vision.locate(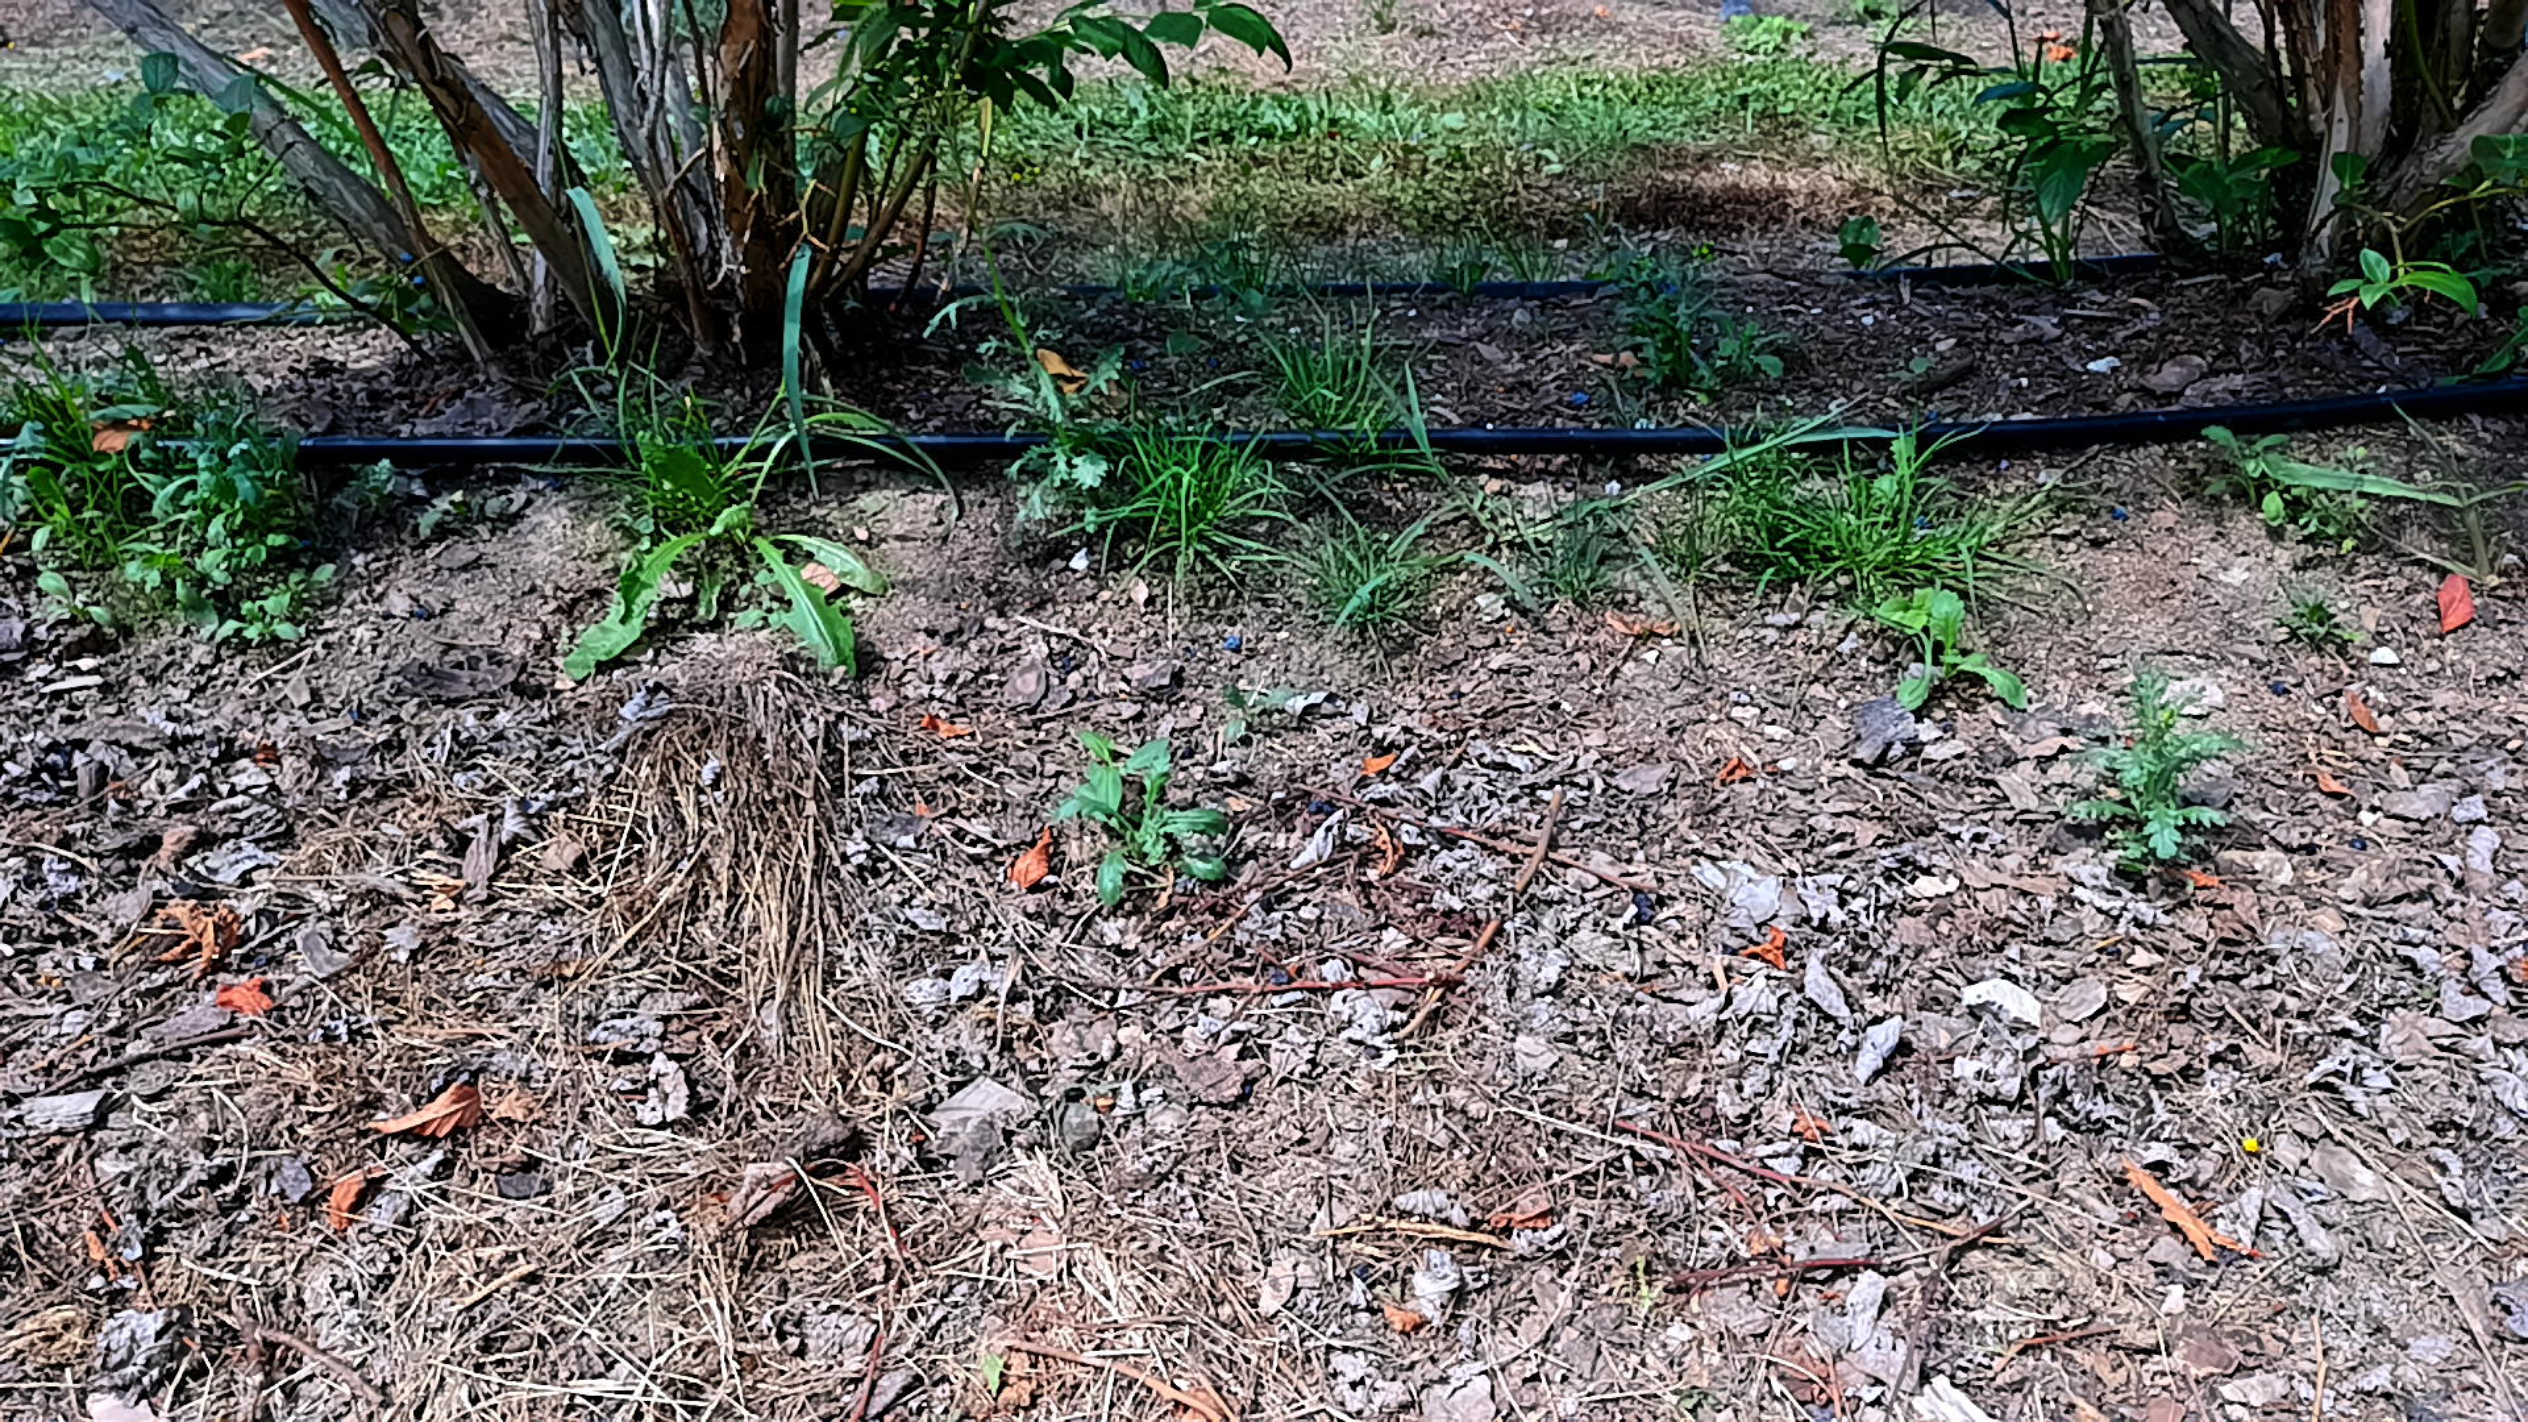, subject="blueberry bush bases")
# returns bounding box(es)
[254,88,973,528]
[2096,49,2528,411]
